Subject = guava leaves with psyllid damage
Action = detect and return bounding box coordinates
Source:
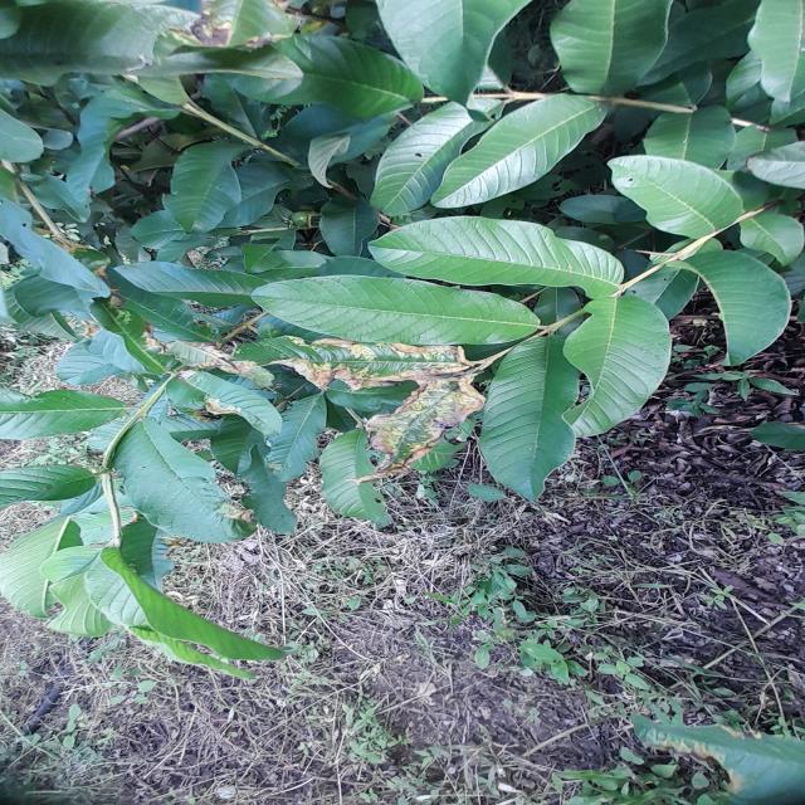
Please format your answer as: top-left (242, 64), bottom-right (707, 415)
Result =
top-left (104, 420), bottom-right (258, 564)
top-left (176, 369), bottom-right (289, 447)
top-left (353, 369), bottom-right (488, 496)
top-left (215, 341), bottom-right (496, 394)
